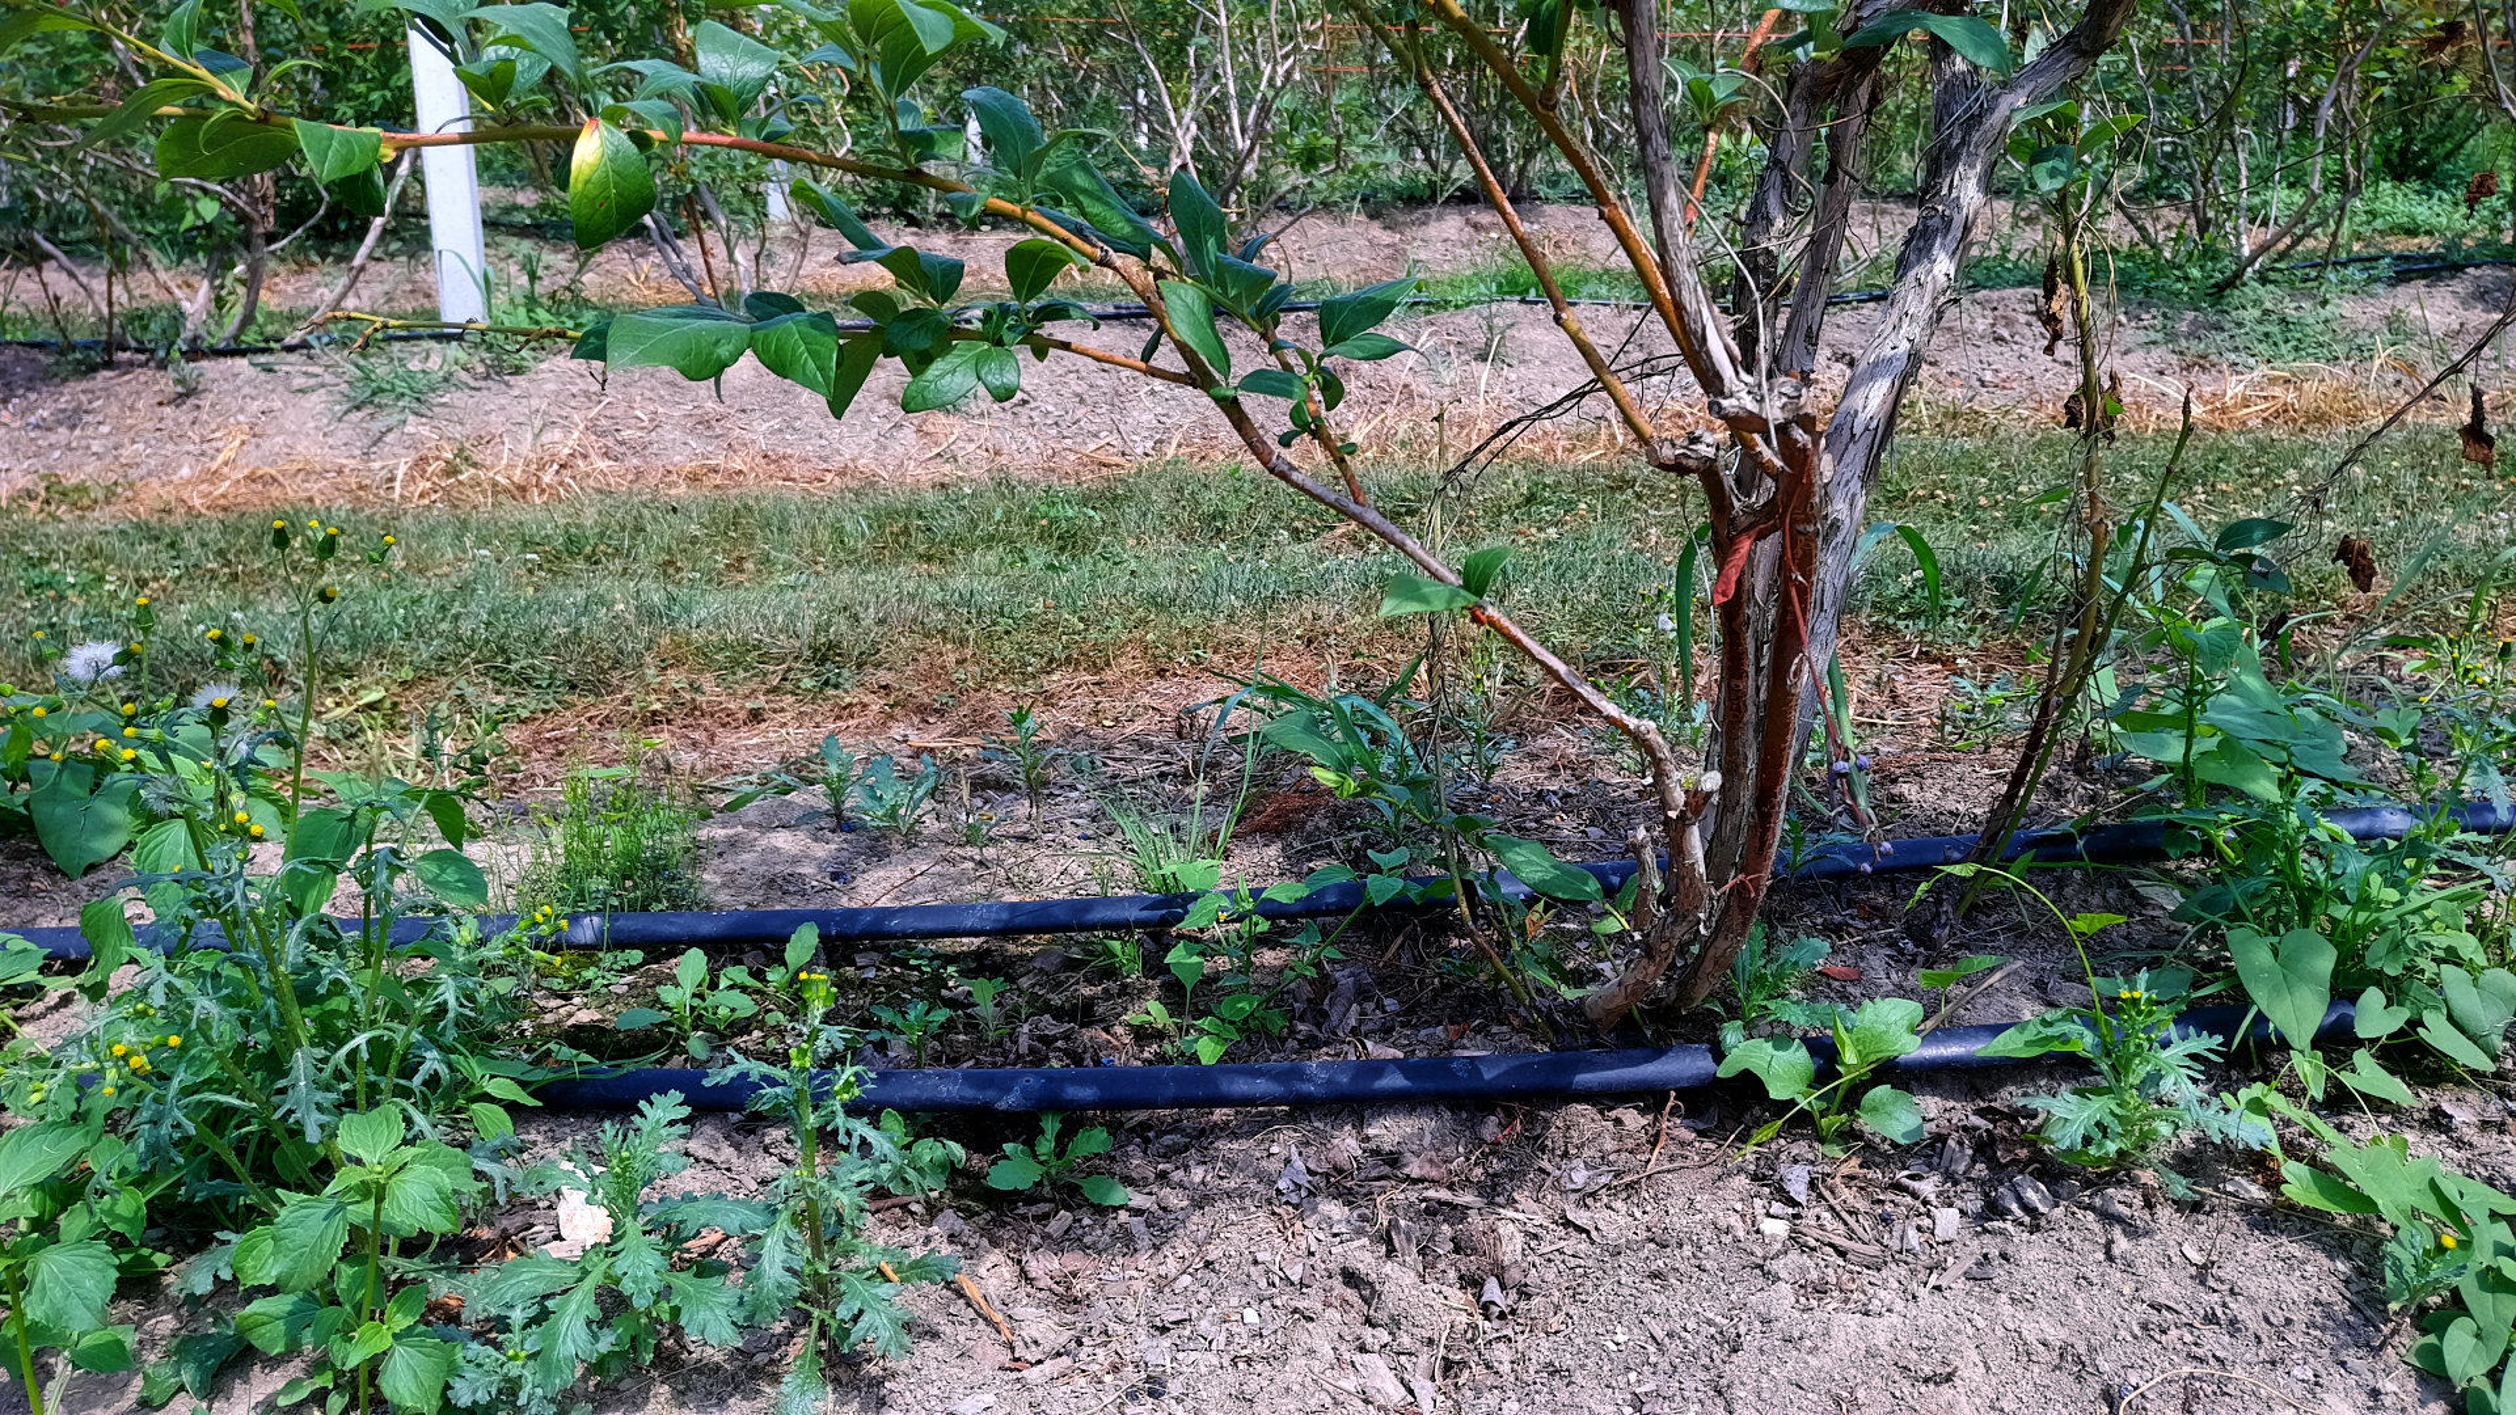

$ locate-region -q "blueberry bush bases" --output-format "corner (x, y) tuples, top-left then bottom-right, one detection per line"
(2114, 194), (2342, 337)
(25, 210), (384, 402)
(1403, 542), (2106, 1180)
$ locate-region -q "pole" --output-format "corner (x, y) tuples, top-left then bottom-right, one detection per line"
(408, 26), (493, 352)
